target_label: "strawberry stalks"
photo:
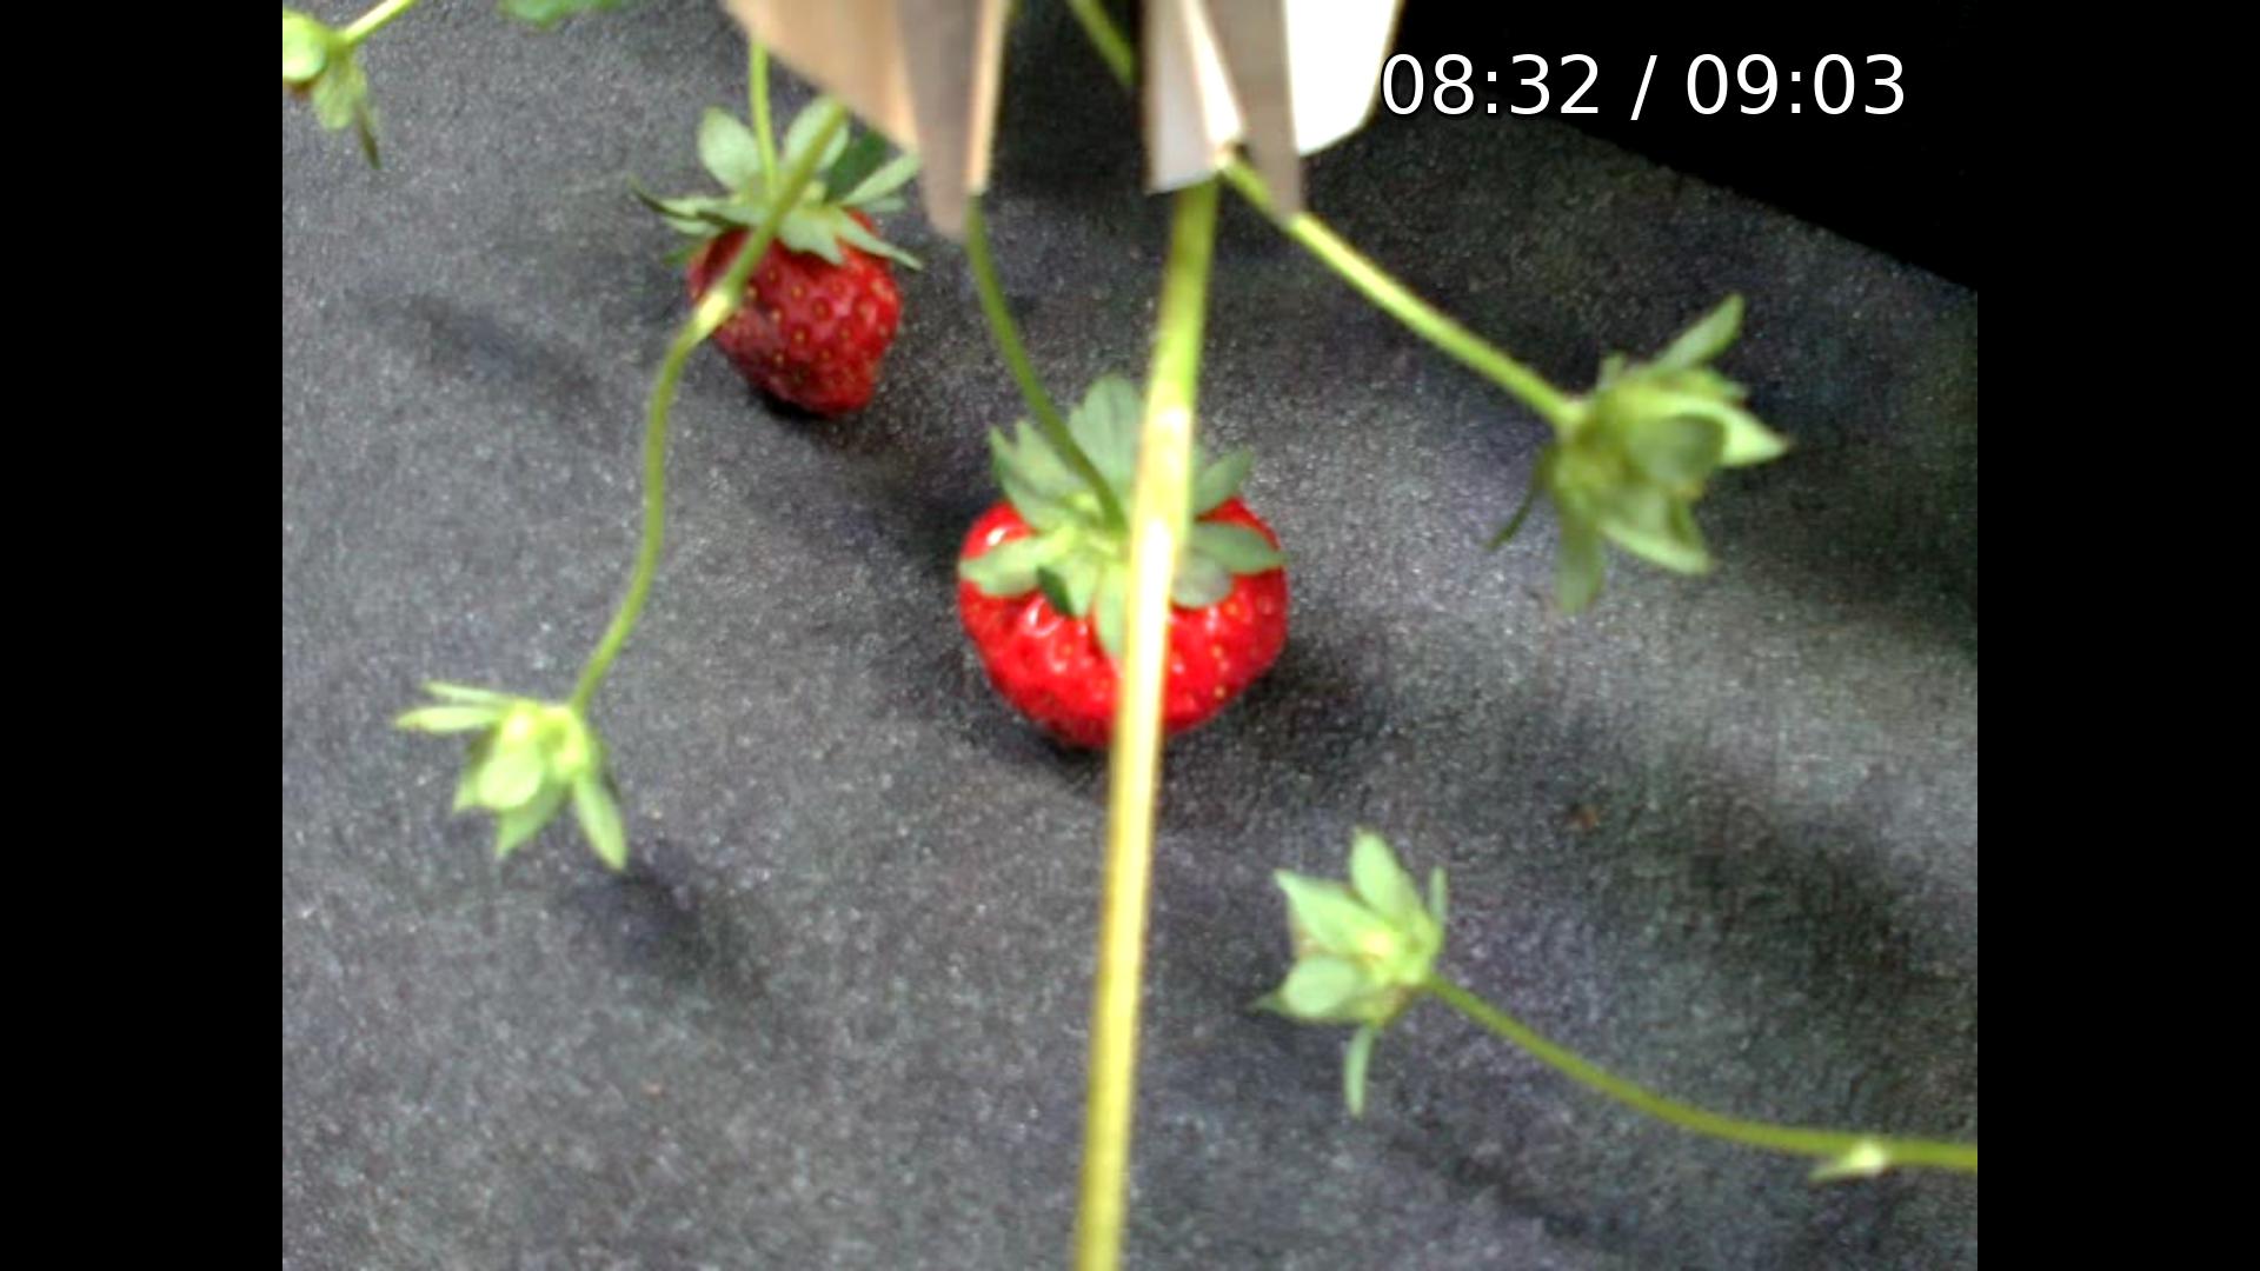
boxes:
[669,35,863,275]
[1385,891,1605,1090]
[1402,274,1630,469]
[318,4,427,80]
[537,542,648,767]
[946,228,1135,589]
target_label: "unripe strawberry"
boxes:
[1277,859,1425,1023]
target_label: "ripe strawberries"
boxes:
[919,449,1320,760]
[677,179,904,434]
